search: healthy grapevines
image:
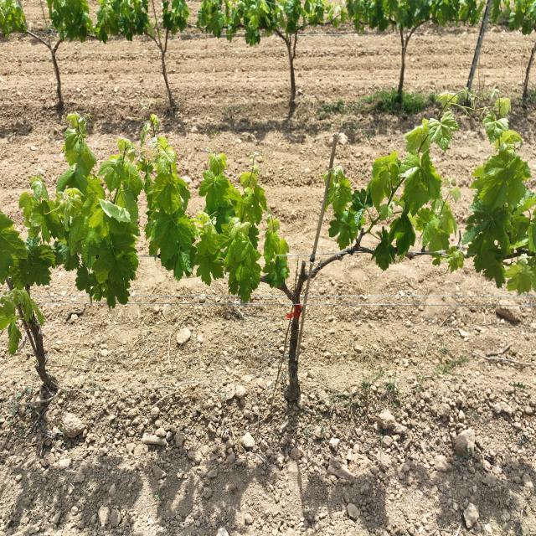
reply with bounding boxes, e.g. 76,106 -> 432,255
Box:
142,118 -> 530,415
0,107 -> 142,405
